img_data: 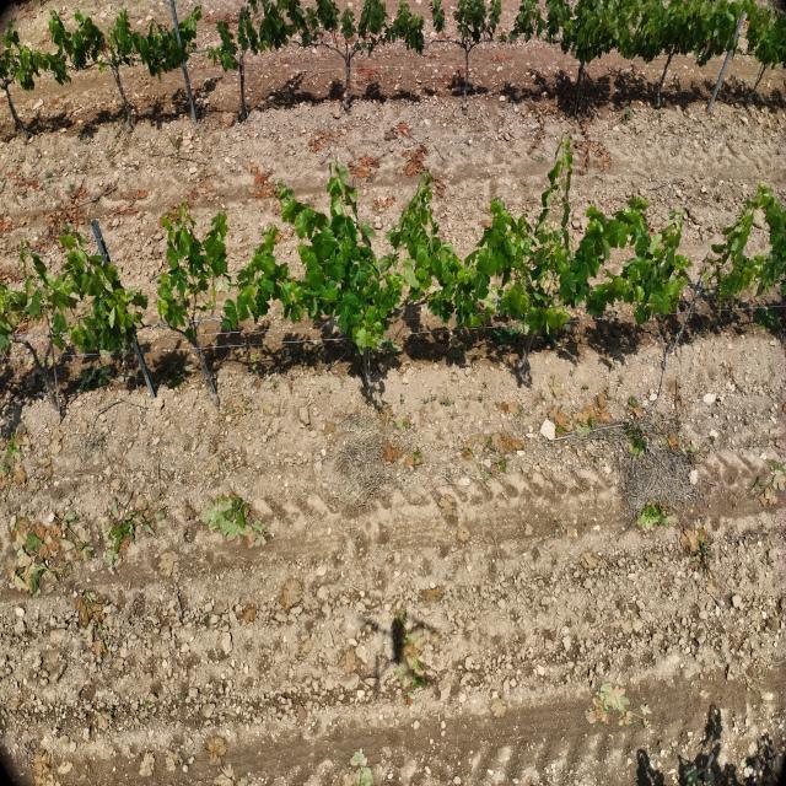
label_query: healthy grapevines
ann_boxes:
[268,174,449,415]
[422,168,626,389]
[621,180,786,363]
[115,206,271,421]
[2,226,114,445]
